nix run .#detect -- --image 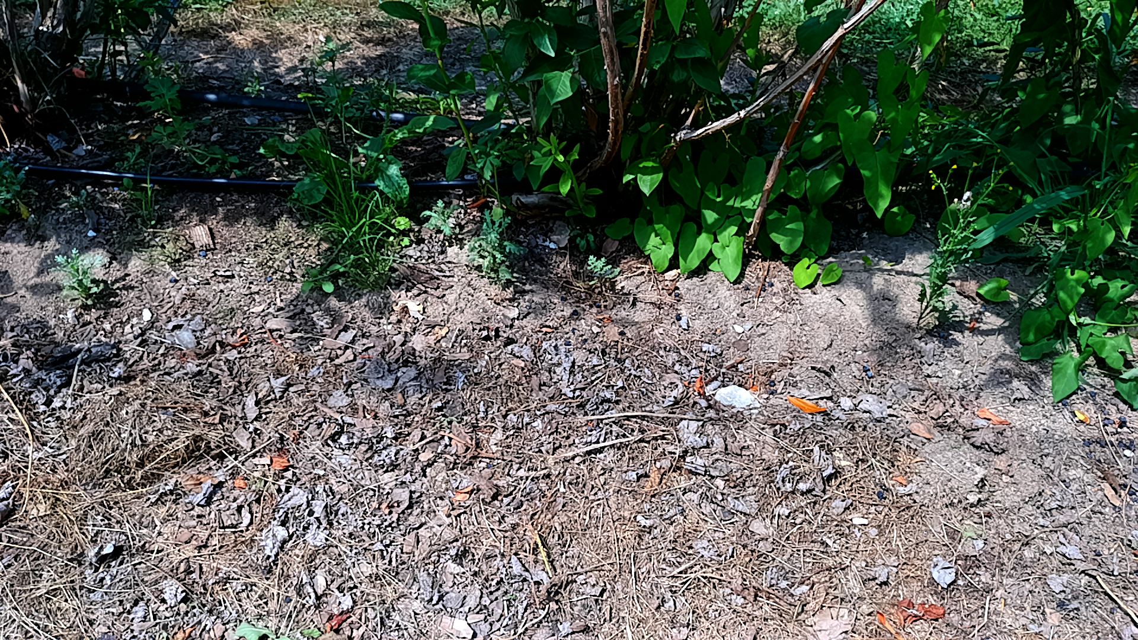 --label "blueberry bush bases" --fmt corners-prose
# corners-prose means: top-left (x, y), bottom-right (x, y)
top-left (1, 7), bottom-right (174, 185)
top-left (492, 66), bottom-right (835, 269)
